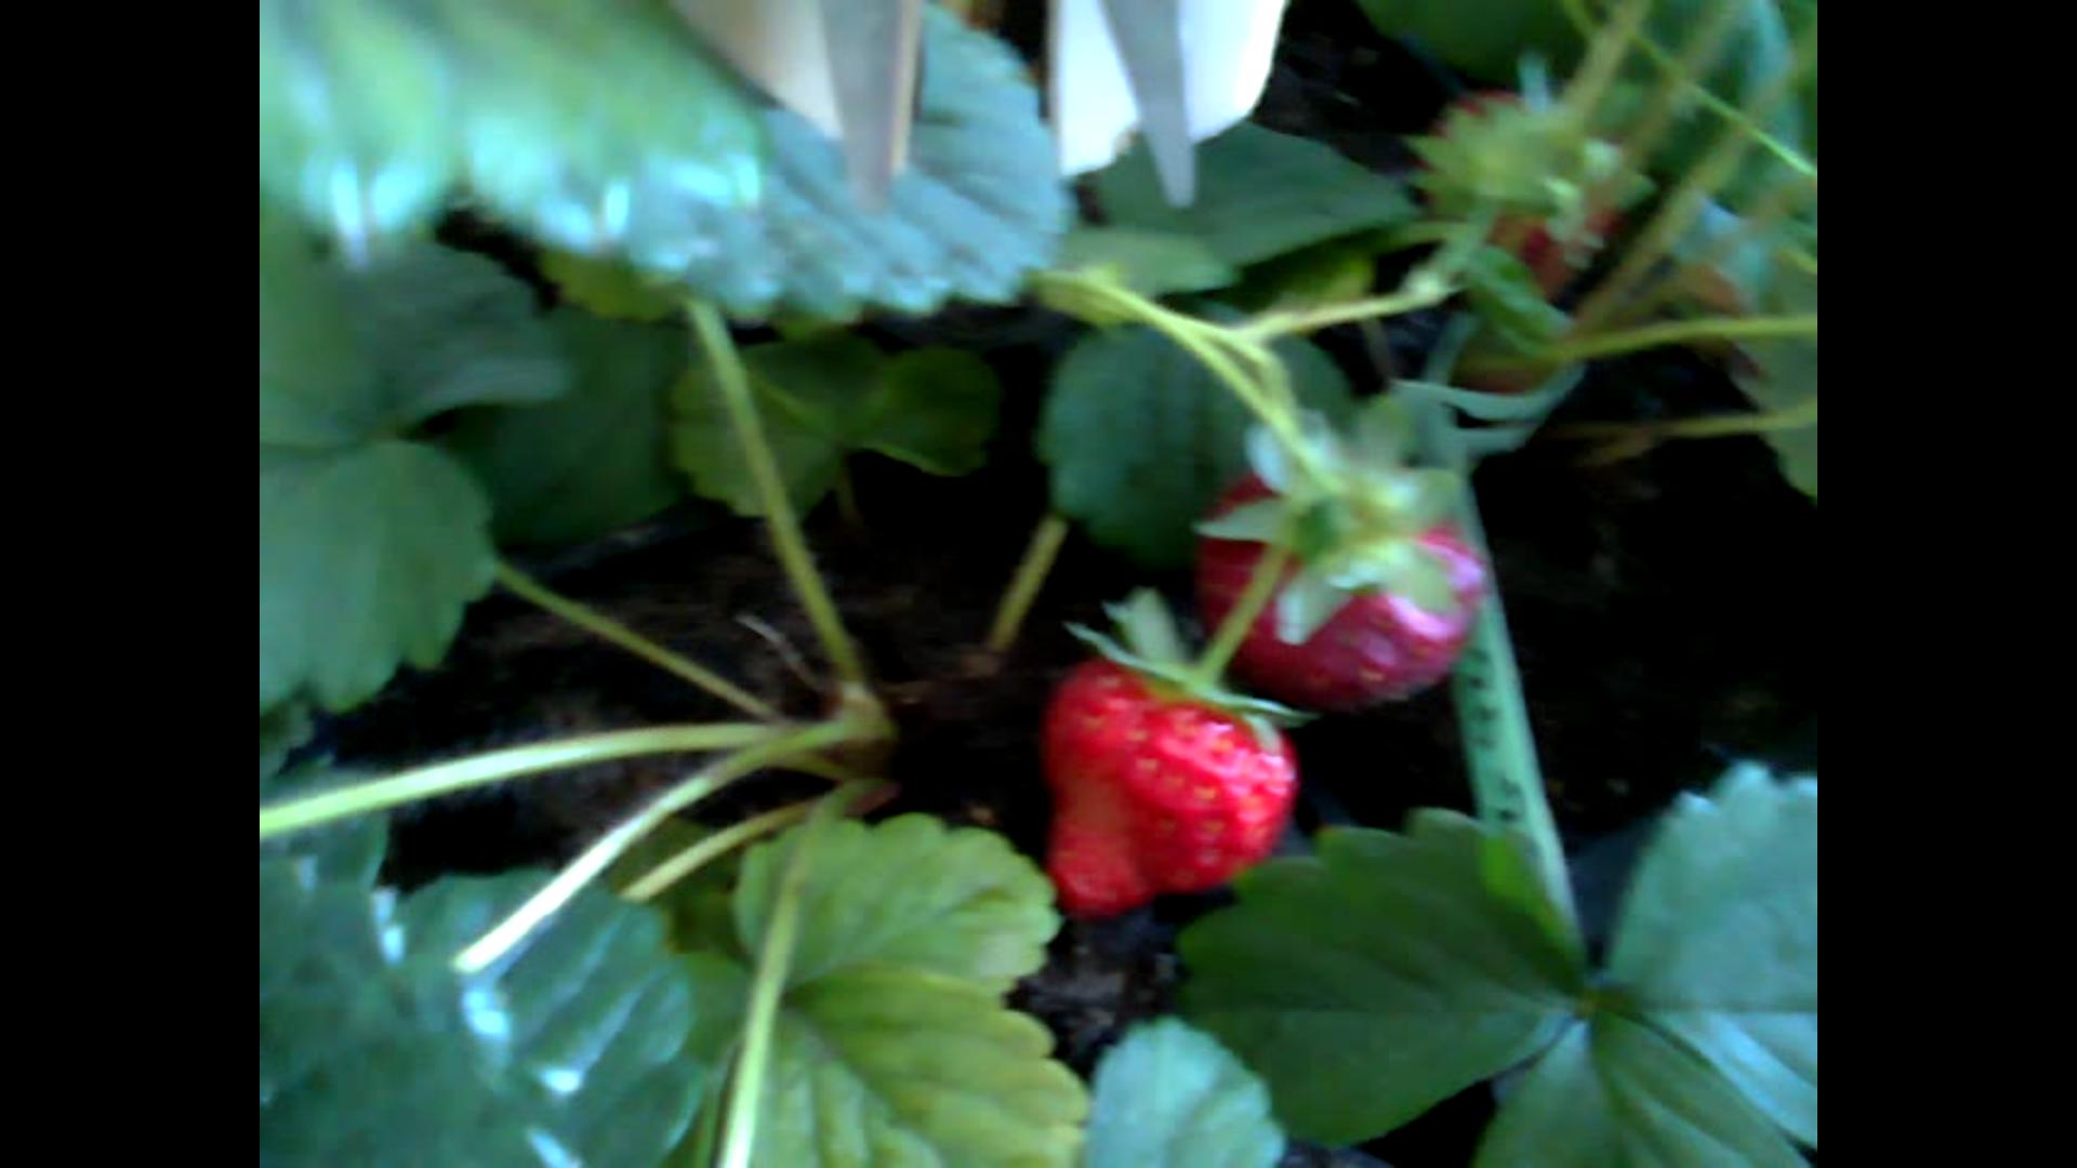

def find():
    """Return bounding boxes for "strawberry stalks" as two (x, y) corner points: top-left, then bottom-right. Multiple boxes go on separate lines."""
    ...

(1162, 329), (1437, 579)
(1147, 468), (1312, 746)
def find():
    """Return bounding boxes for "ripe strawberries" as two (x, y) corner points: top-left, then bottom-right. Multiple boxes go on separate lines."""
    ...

(961, 623), (1346, 933)
(1166, 480), (1547, 711)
